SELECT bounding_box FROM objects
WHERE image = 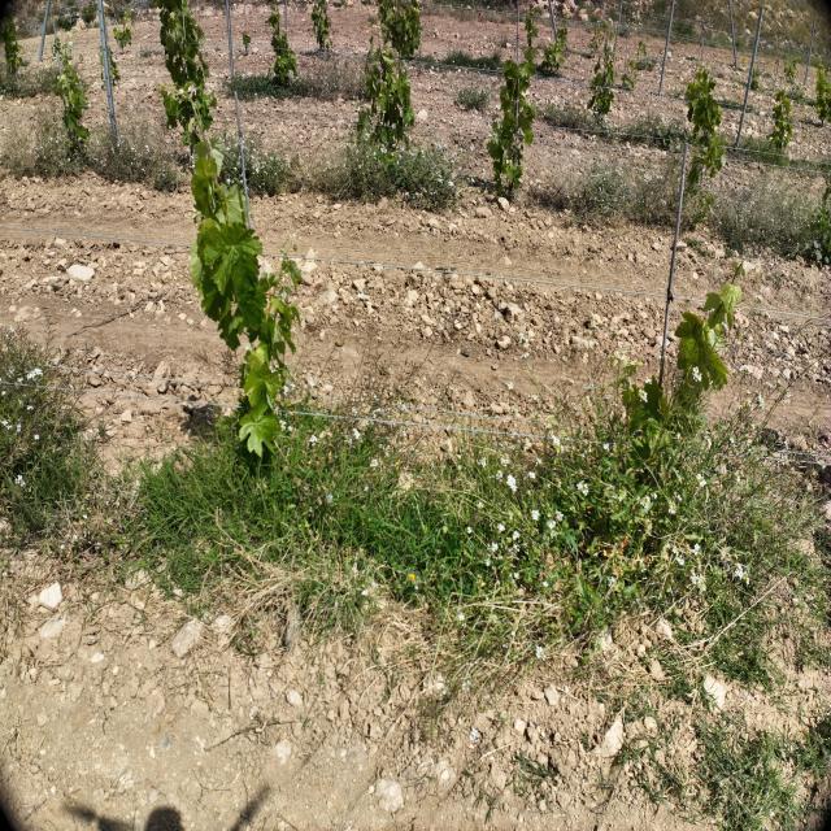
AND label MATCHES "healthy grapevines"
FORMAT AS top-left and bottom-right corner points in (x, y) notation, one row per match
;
(153, 68), (319, 467)
(635, 254), (756, 470)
